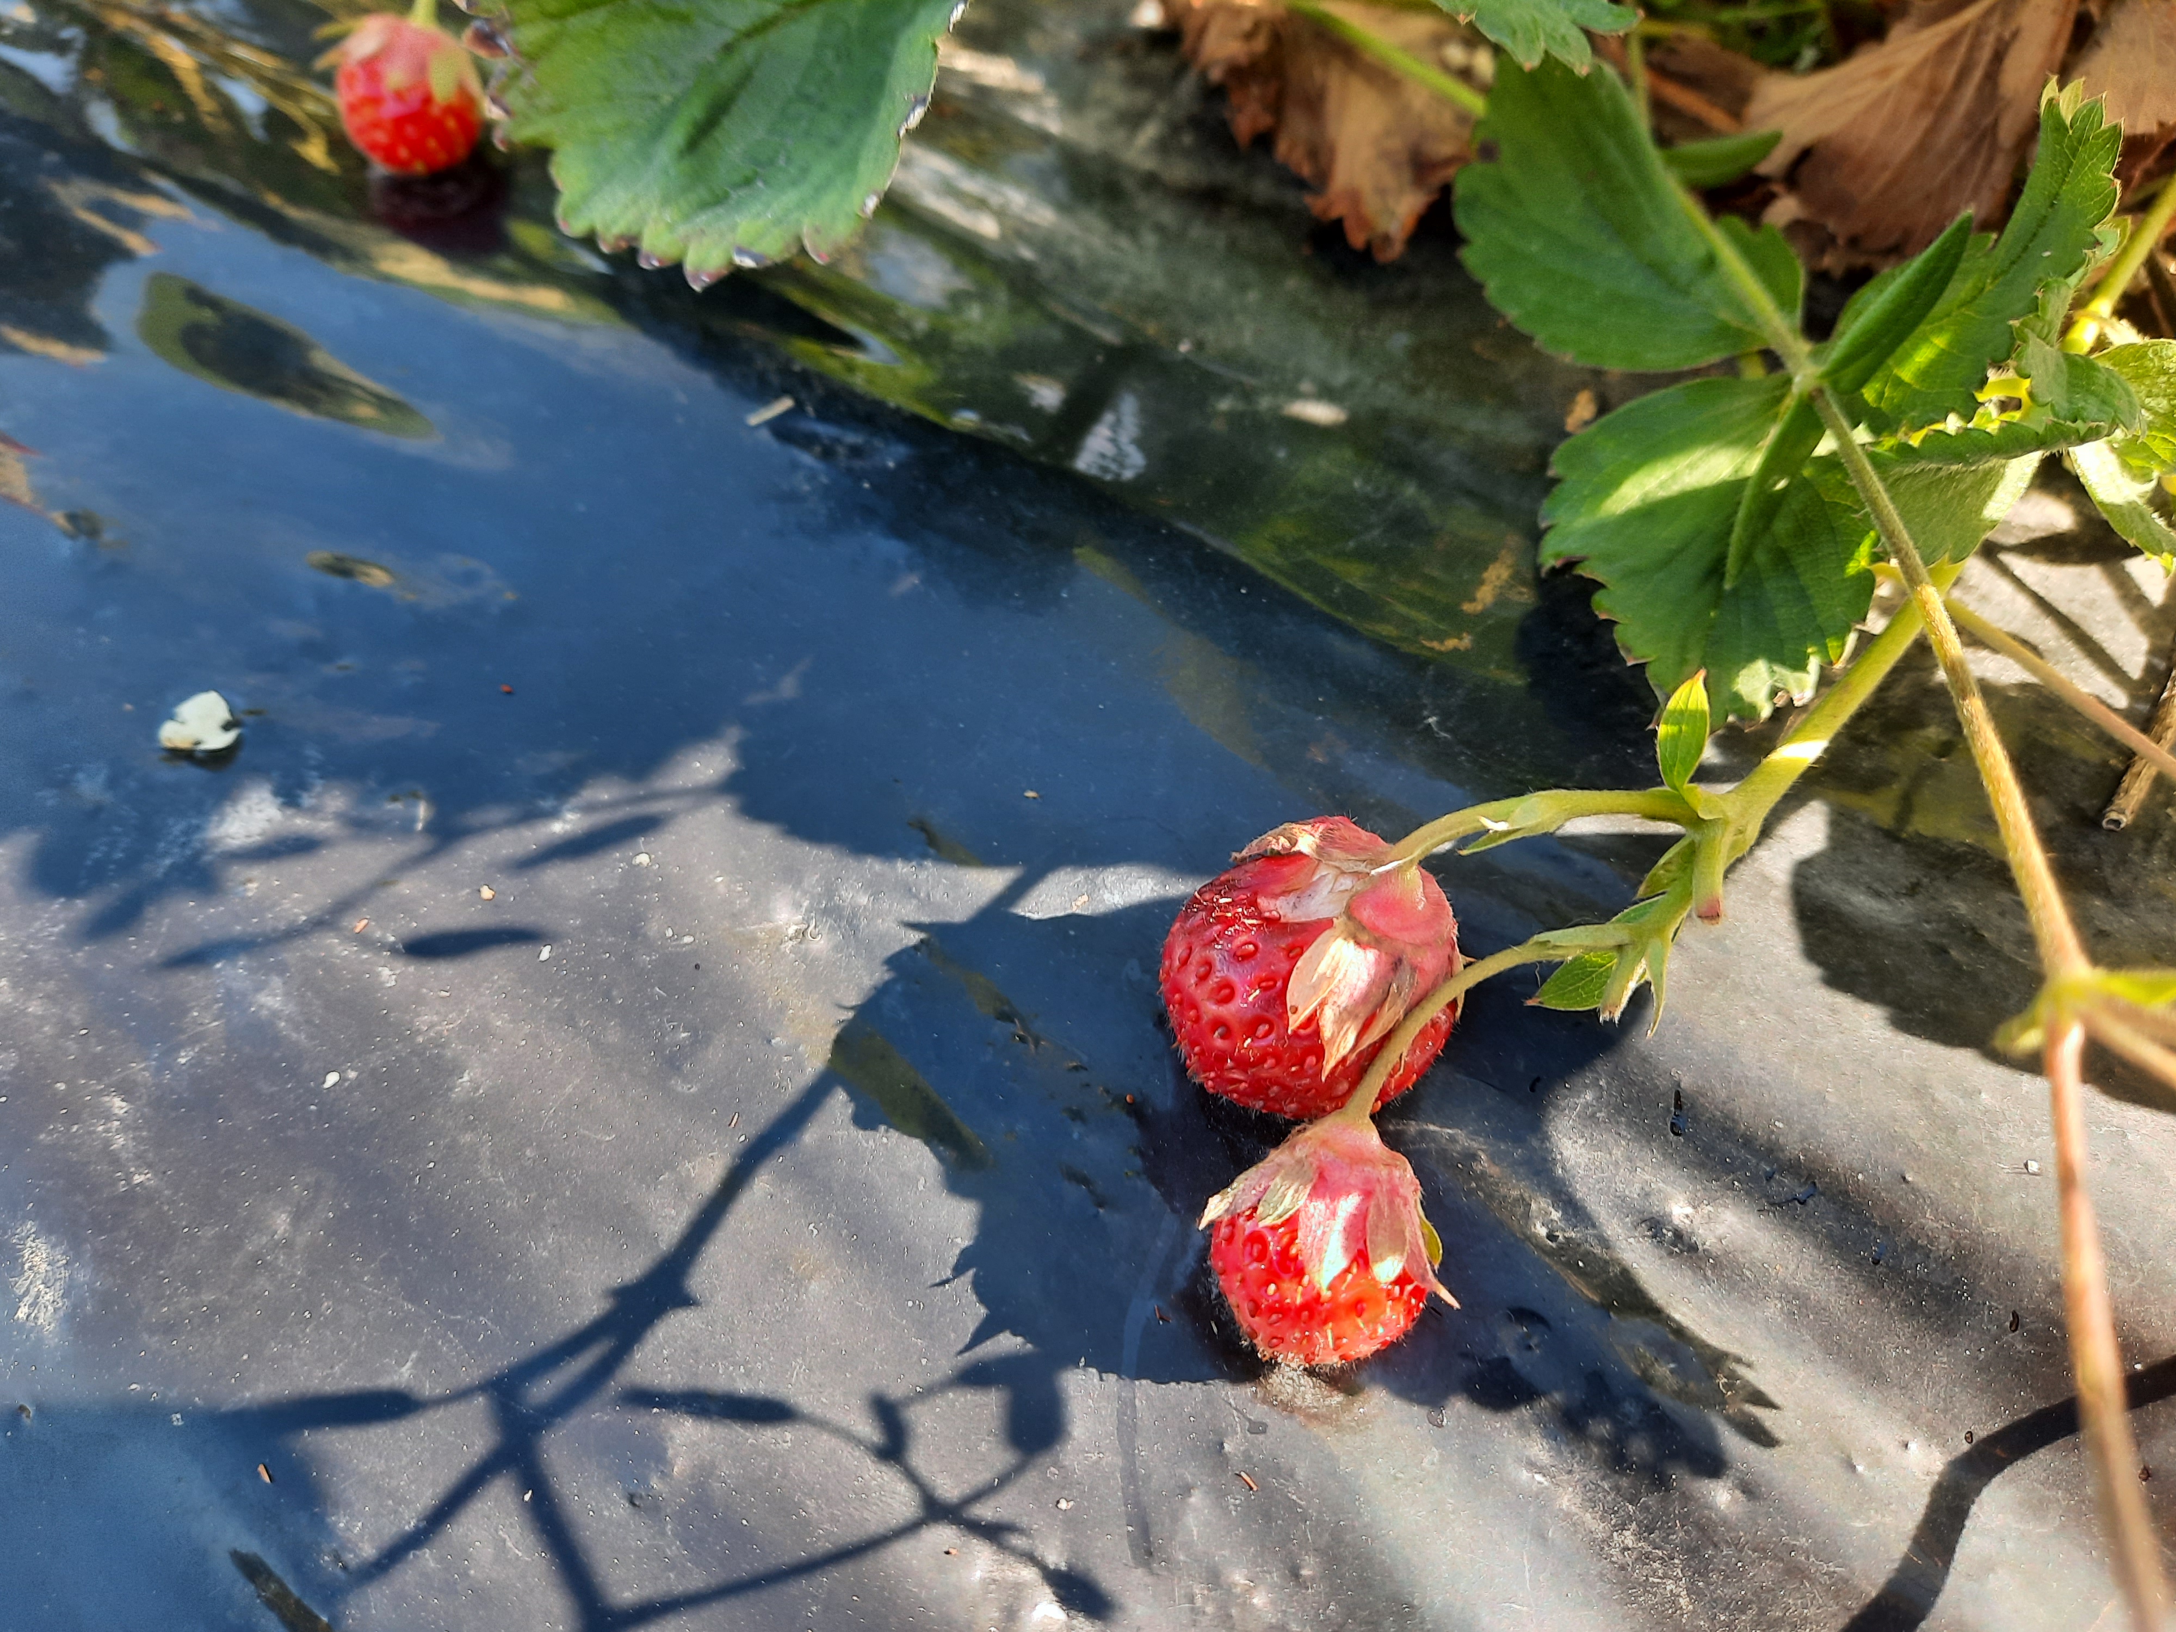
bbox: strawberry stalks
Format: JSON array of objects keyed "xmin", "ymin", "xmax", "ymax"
[
  {"xmin": 1351, "ymin": 764, "xmax": 1667, "ymax": 912},
  {"xmin": 1325, "ymin": 946, "xmax": 1555, "ymax": 1193},
  {"xmin": 400, "ymin": 0, "xmax": 436, "ymax": 68}
]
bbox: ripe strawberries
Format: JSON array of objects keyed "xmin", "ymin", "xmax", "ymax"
[
  {"xmin": 1190, "ymin": 844, "xmax": 1493, "ymax": 1115},
  {"xmin": 1214, "ymin": 1163, "xmax": 1433, "ymax": 1359},
  {"xmin": 332, "ymin": 20, "xmax": 485, "ymax": 166}
]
